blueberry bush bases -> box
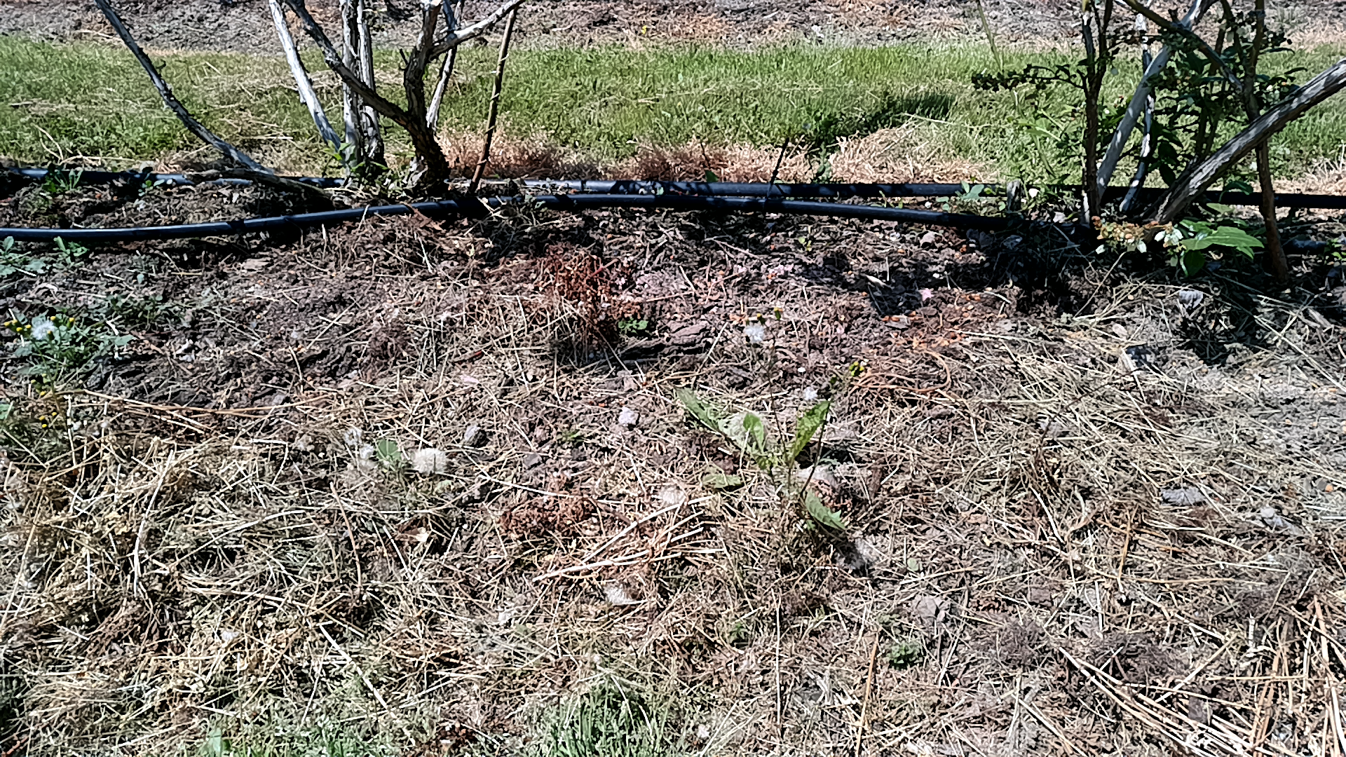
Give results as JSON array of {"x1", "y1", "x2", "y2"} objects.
[
  {"x1": 1040, "y1": 94, "x2": 1263, "y2": 298},
  {"x1": 238, "y1": 62, "x2": 526, "y2": 246}
]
